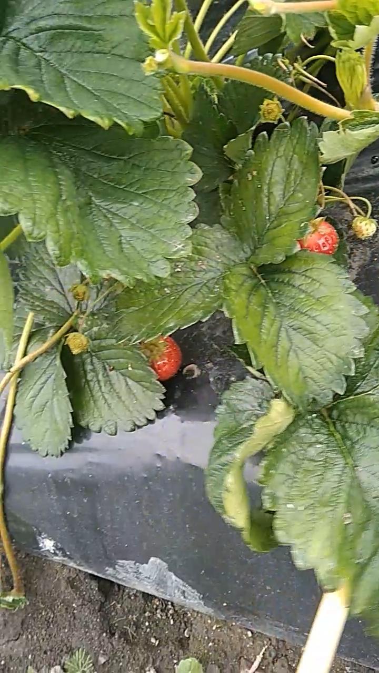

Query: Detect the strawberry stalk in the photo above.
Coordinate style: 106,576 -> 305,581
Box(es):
356,191 -> 377,221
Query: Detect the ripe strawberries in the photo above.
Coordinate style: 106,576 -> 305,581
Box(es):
302,216 -> 337,257
142,336 -> 181,383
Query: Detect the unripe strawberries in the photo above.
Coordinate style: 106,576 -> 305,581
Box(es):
67,330 -> 88,356
353,211 -> 379,242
